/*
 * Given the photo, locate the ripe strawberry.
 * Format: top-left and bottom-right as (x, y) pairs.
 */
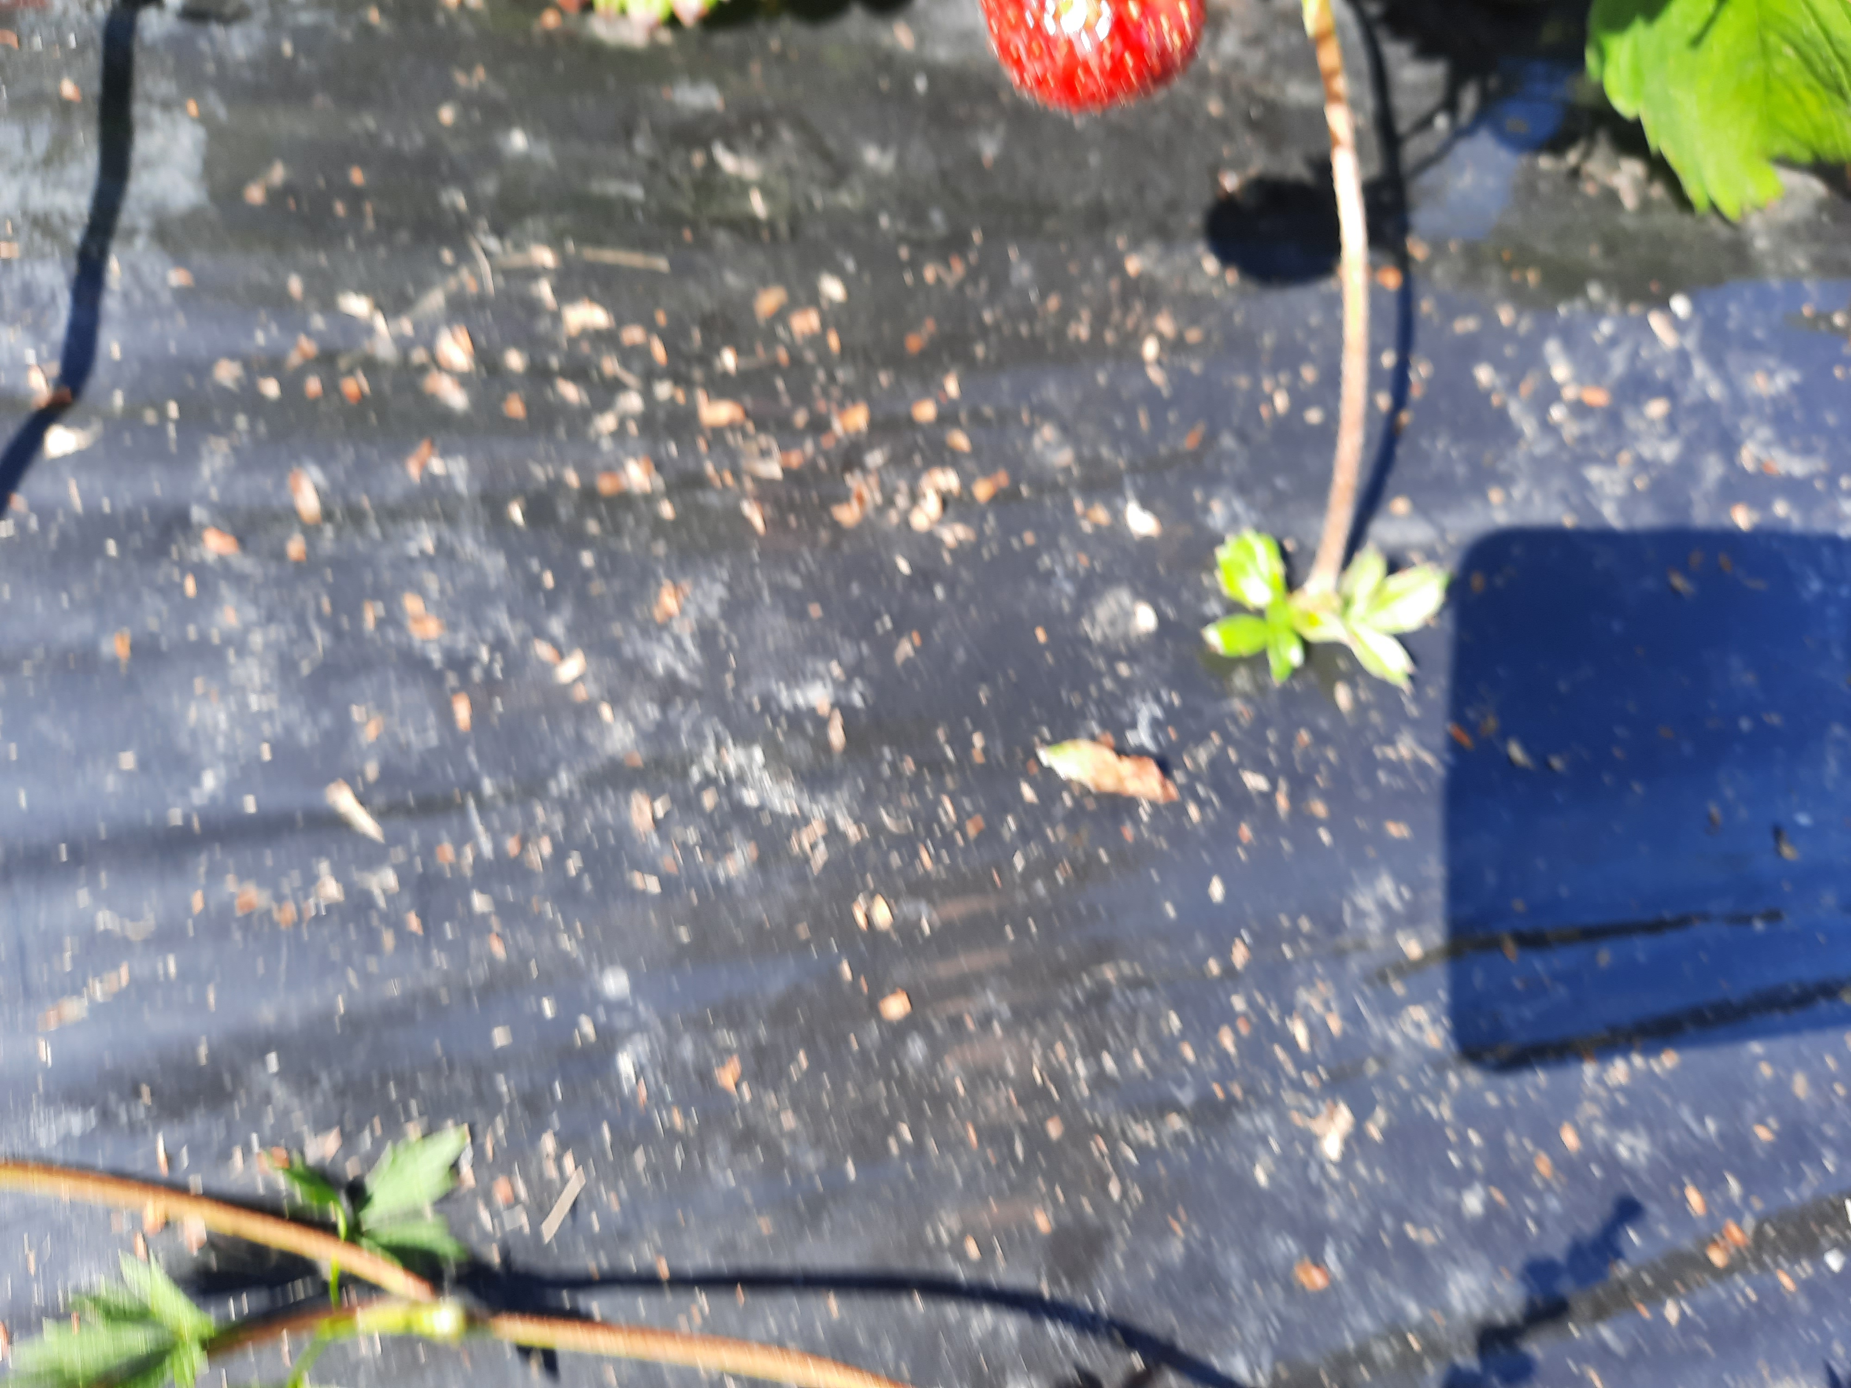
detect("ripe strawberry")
(966, 4), (1227, 120)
